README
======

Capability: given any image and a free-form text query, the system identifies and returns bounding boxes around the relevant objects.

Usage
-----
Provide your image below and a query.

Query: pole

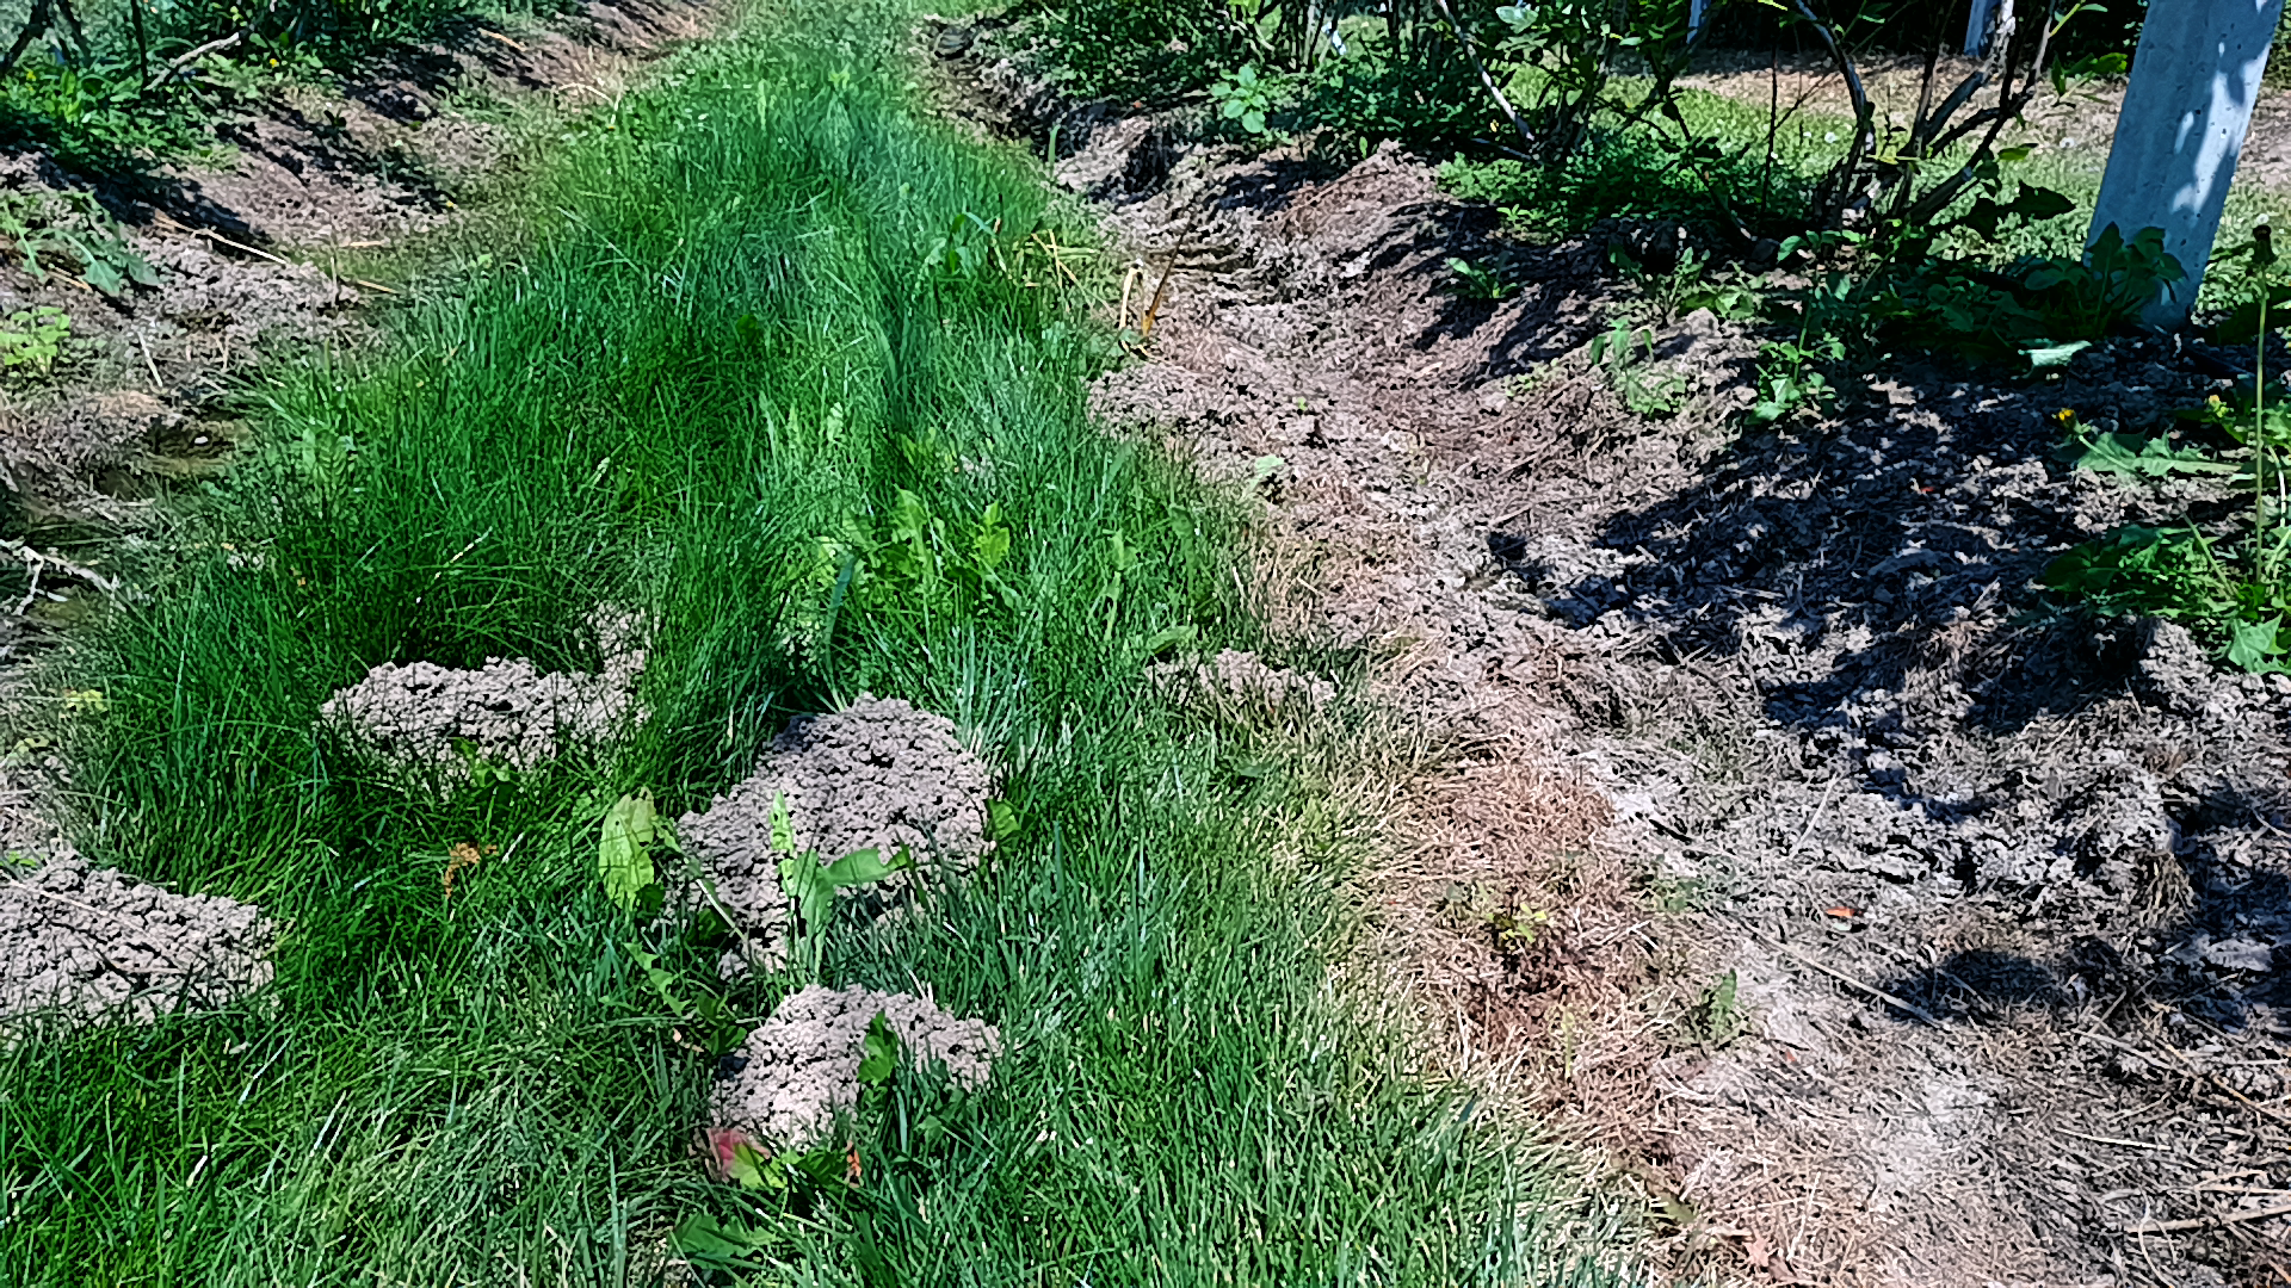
[2062,6,2285,347]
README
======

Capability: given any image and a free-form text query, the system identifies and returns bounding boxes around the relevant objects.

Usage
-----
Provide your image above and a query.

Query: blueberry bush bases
[1401,2,1671,222]
[1711,5,1989,289]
